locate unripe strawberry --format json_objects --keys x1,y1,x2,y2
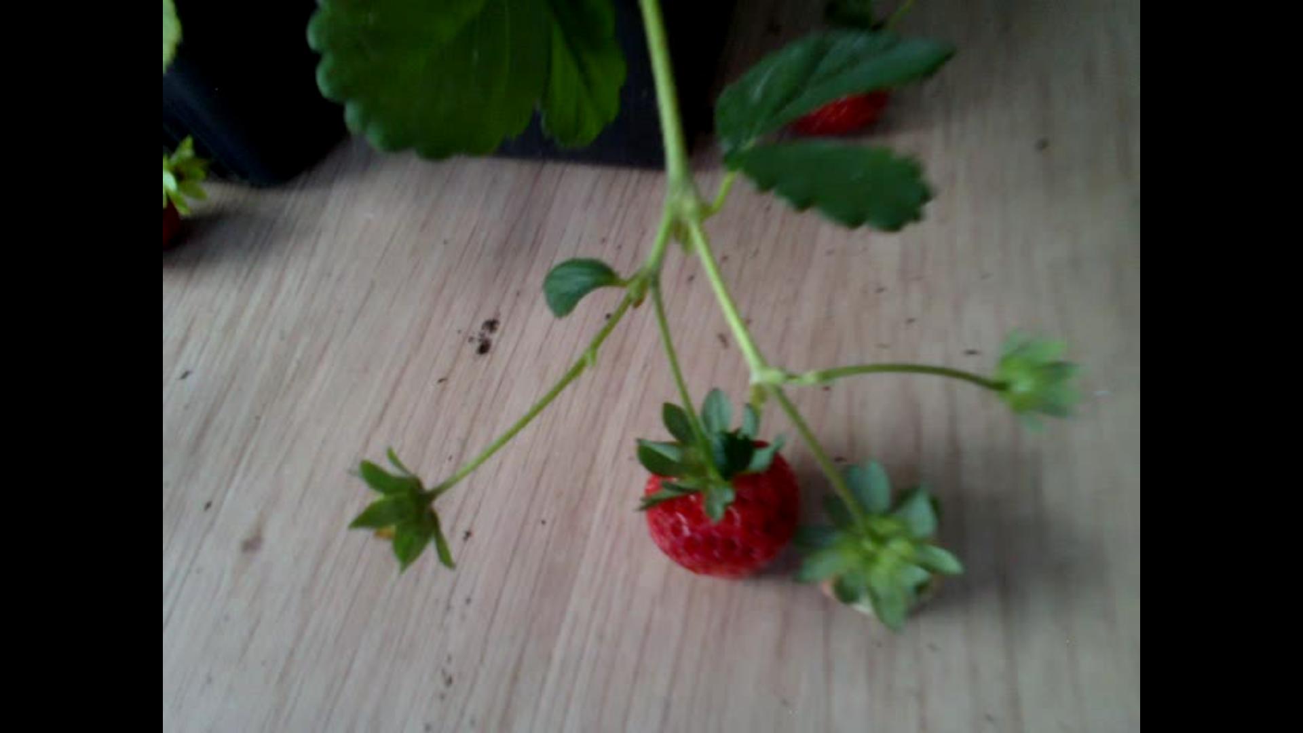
[{"x1": 820, "y1": 508, "x2": 947, "y2": 625}]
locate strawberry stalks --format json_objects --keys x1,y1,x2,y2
[
  {"x1": 817, "y1": 459, "x2": 894, "y2": 546},
  {"x1": 392, "y1": 412, "x2": 528, "y2": 510},
  {"x1": 941, "y1": 352, "x2": 1027, "y2": 405},
  {"x1": 659, "y1": 324, "x2": 712, "y2": 484}
]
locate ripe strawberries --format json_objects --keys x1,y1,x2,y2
[
  {"x1": 652, "y1": 427, "x2": 793, "y2": 577},
  {"x1": 761, "y1": 54, "x2": 951, "y2": 134}
]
